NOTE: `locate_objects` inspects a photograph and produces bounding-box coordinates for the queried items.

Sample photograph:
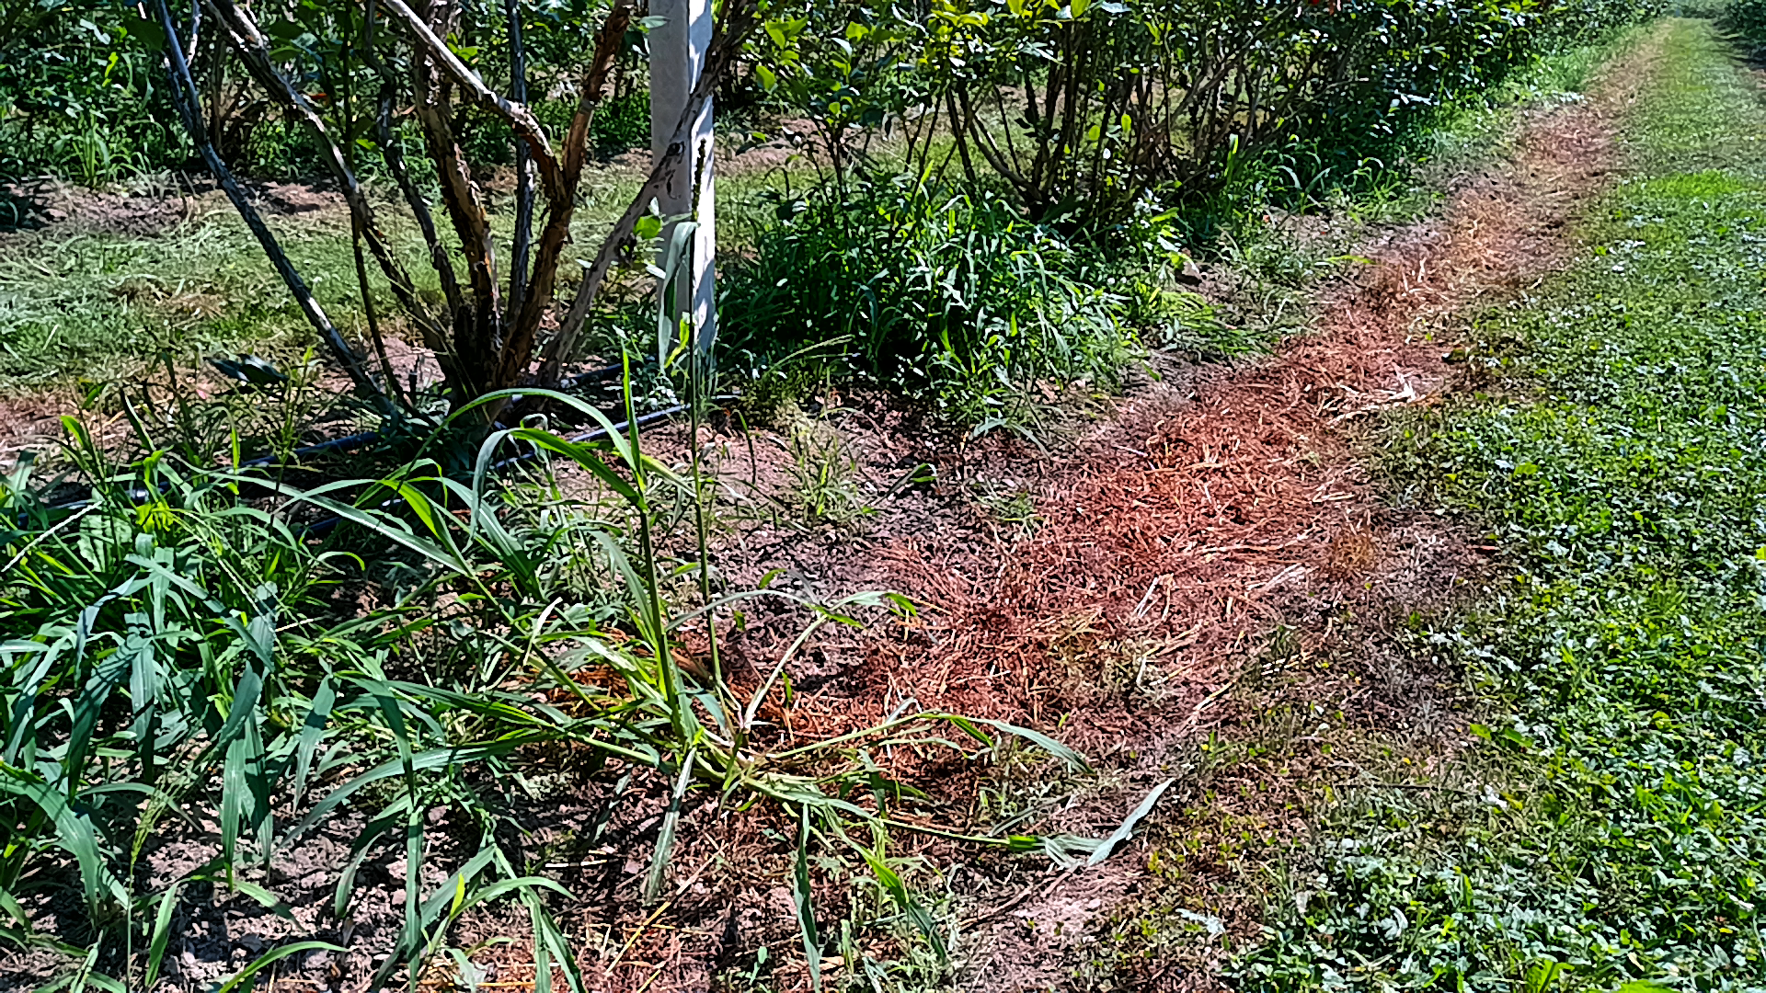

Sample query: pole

[644,1,718,420]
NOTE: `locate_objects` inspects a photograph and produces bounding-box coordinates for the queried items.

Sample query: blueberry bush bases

[1142,97,1268,246]
[944,98,1134,289]
[267,206,637,546]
